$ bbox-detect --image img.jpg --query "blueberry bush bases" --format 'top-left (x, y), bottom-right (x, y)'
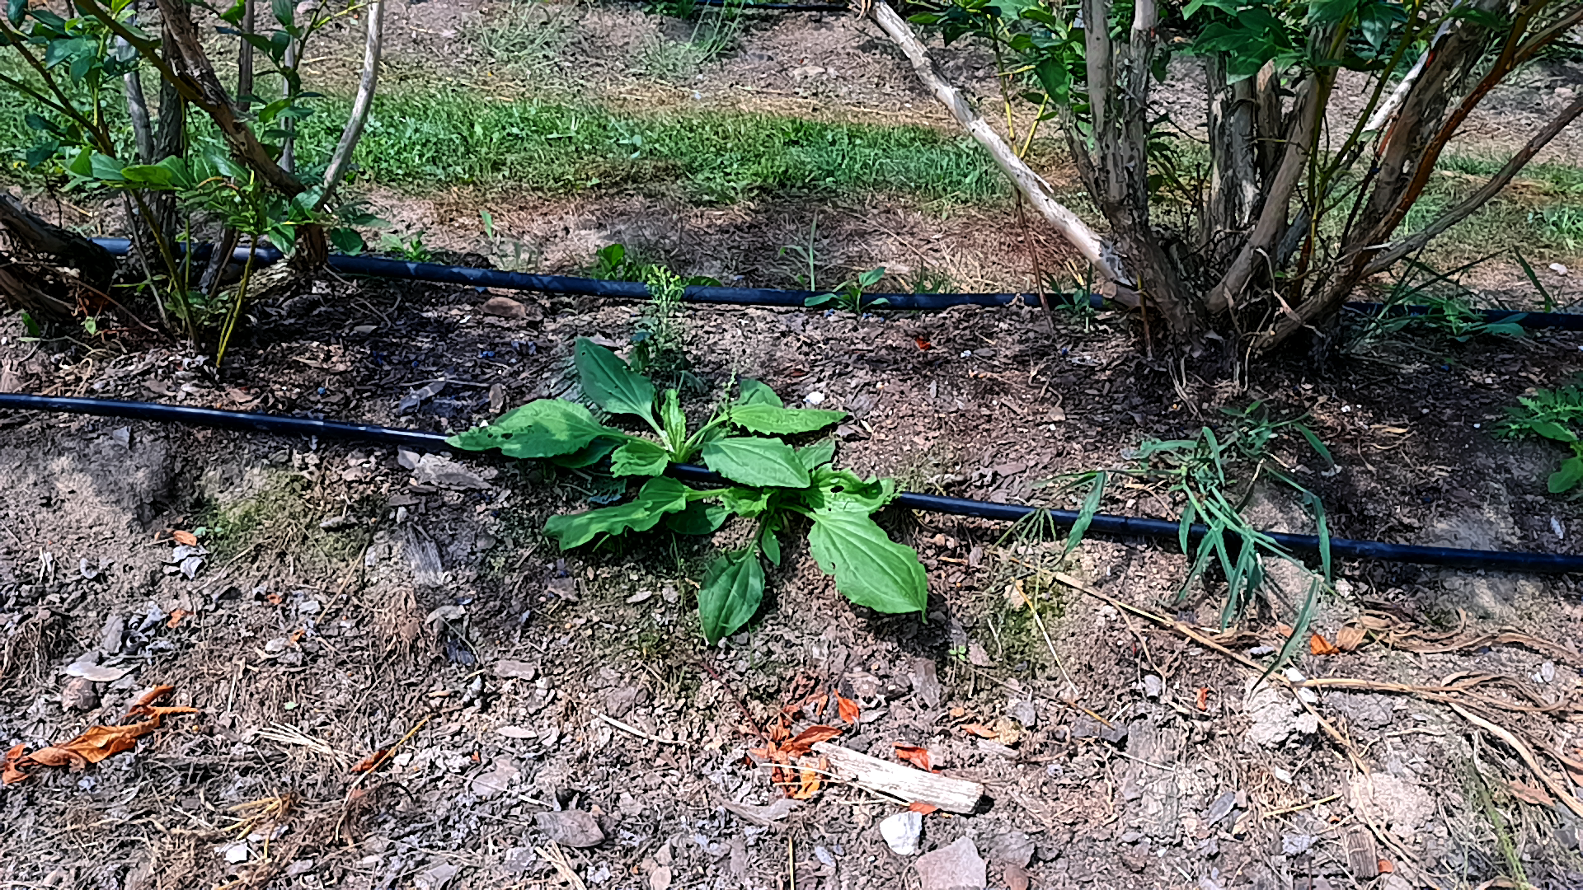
top-left (1008, 101), bottom-right (1486, 428)
top-left (12, 119), bottom-right (373, 410)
